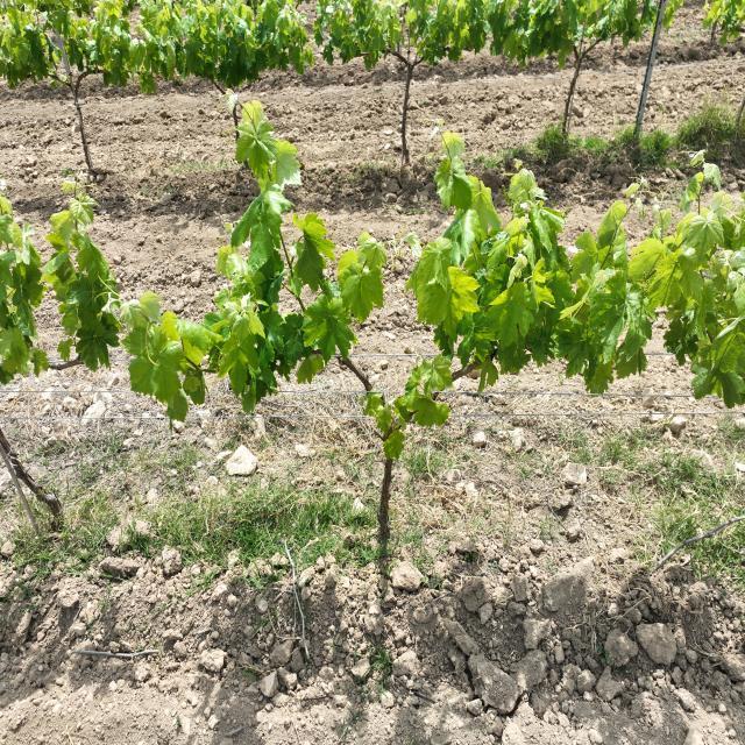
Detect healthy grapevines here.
[122,83,652,604]
[0,179,122,544]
